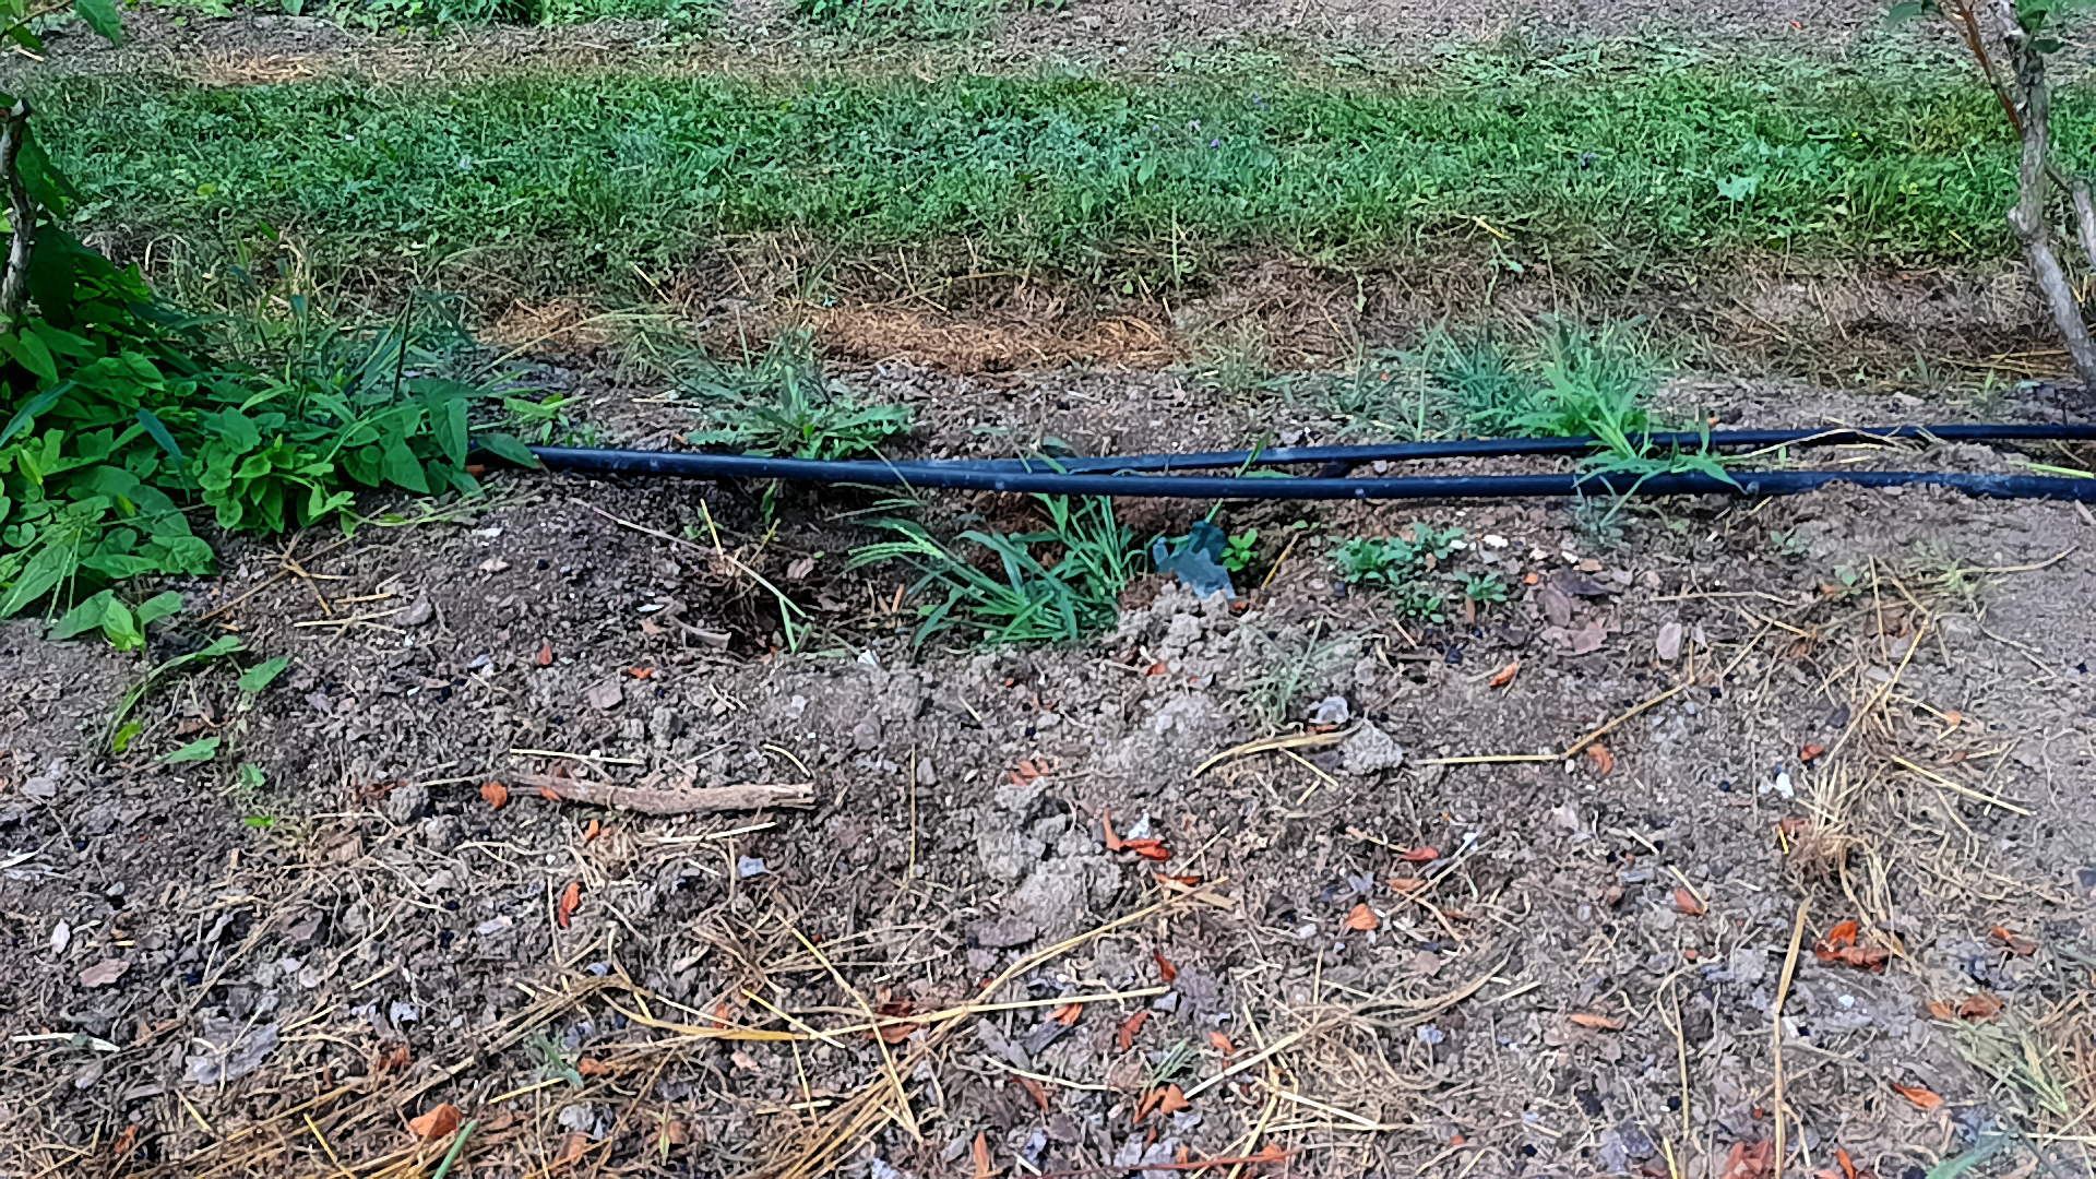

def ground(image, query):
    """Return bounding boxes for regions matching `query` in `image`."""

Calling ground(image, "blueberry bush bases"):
[2,153,170,525]
[2018,250,2096,538]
